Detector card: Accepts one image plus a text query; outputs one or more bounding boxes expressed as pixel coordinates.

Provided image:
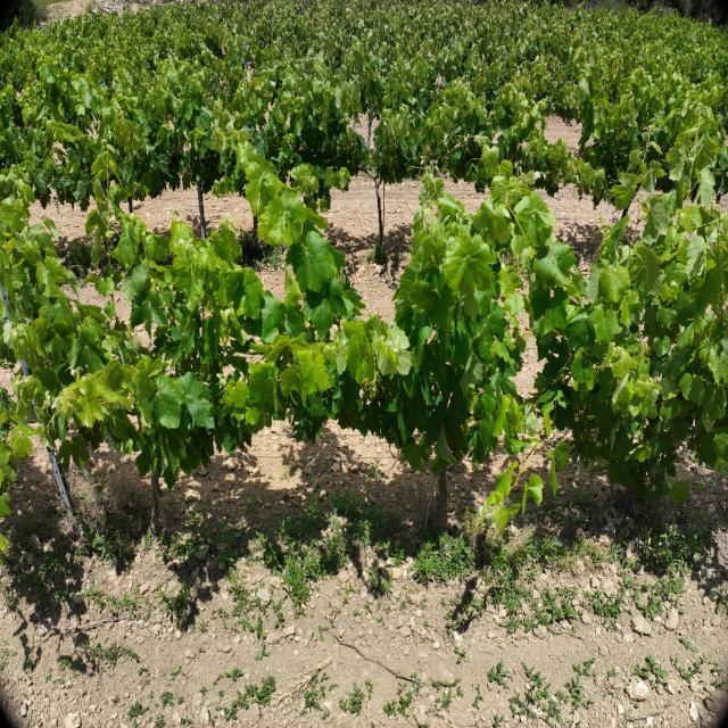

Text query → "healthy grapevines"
[0,193,286,560]
[510,167,728,528]
[263,196,573,566]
